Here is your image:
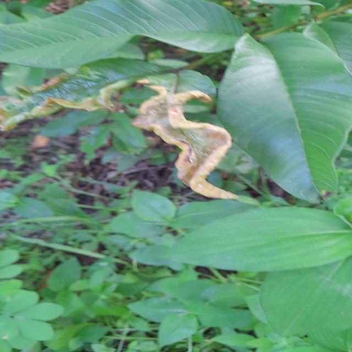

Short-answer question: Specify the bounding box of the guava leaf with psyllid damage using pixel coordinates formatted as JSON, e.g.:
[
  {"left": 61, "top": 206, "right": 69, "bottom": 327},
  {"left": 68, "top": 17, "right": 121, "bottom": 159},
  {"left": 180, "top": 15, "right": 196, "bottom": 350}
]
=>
[{"left": 123, "top": 70, "right": 243, "bottom": 207}]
